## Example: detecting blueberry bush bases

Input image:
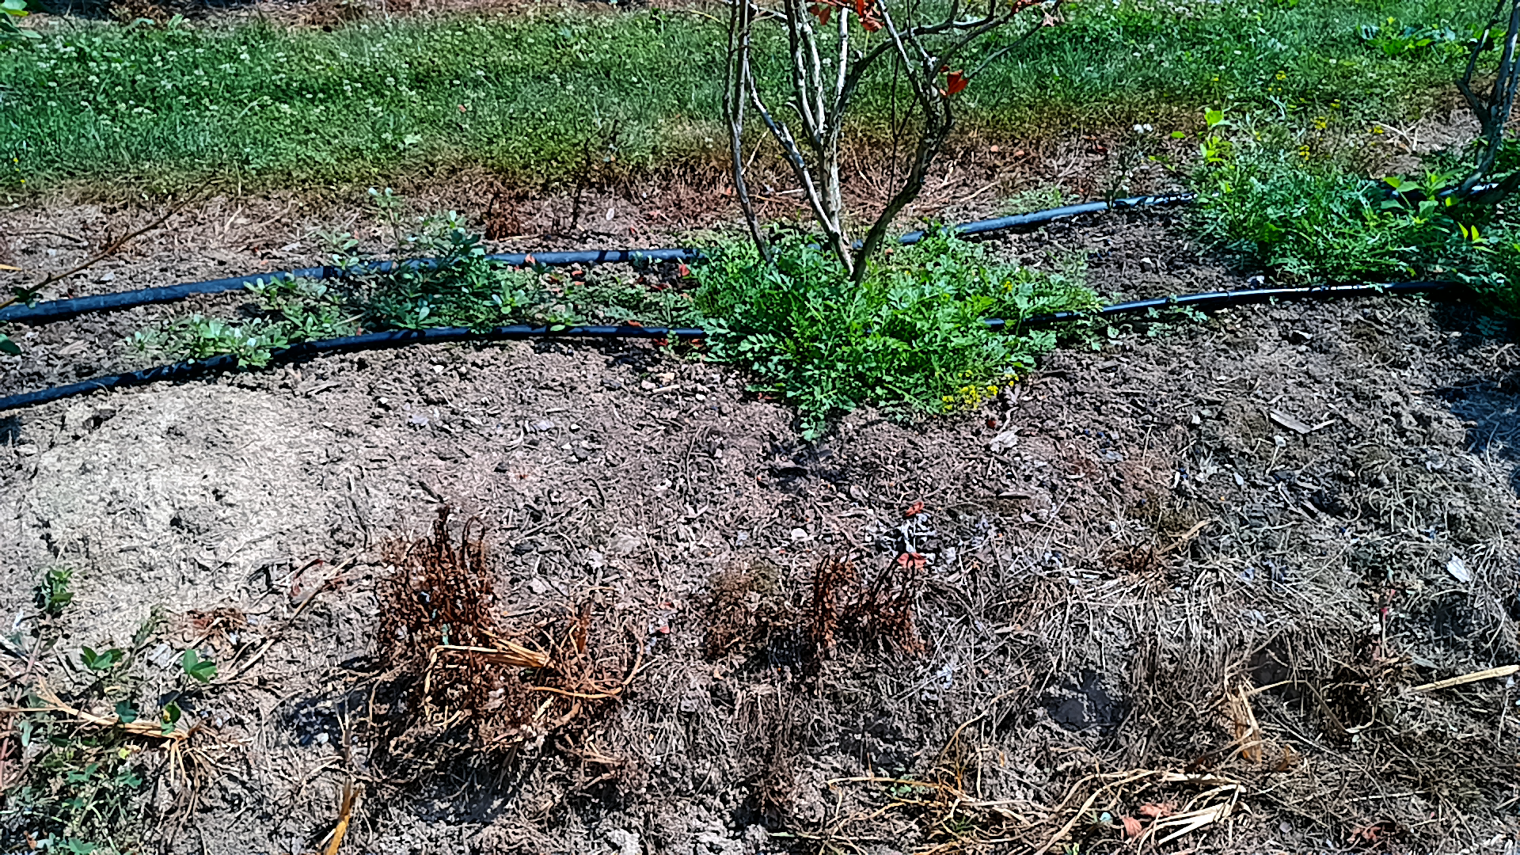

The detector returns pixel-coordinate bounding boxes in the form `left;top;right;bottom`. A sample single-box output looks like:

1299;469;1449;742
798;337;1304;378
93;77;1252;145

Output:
691;120;946;396
1399;71;1517;299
